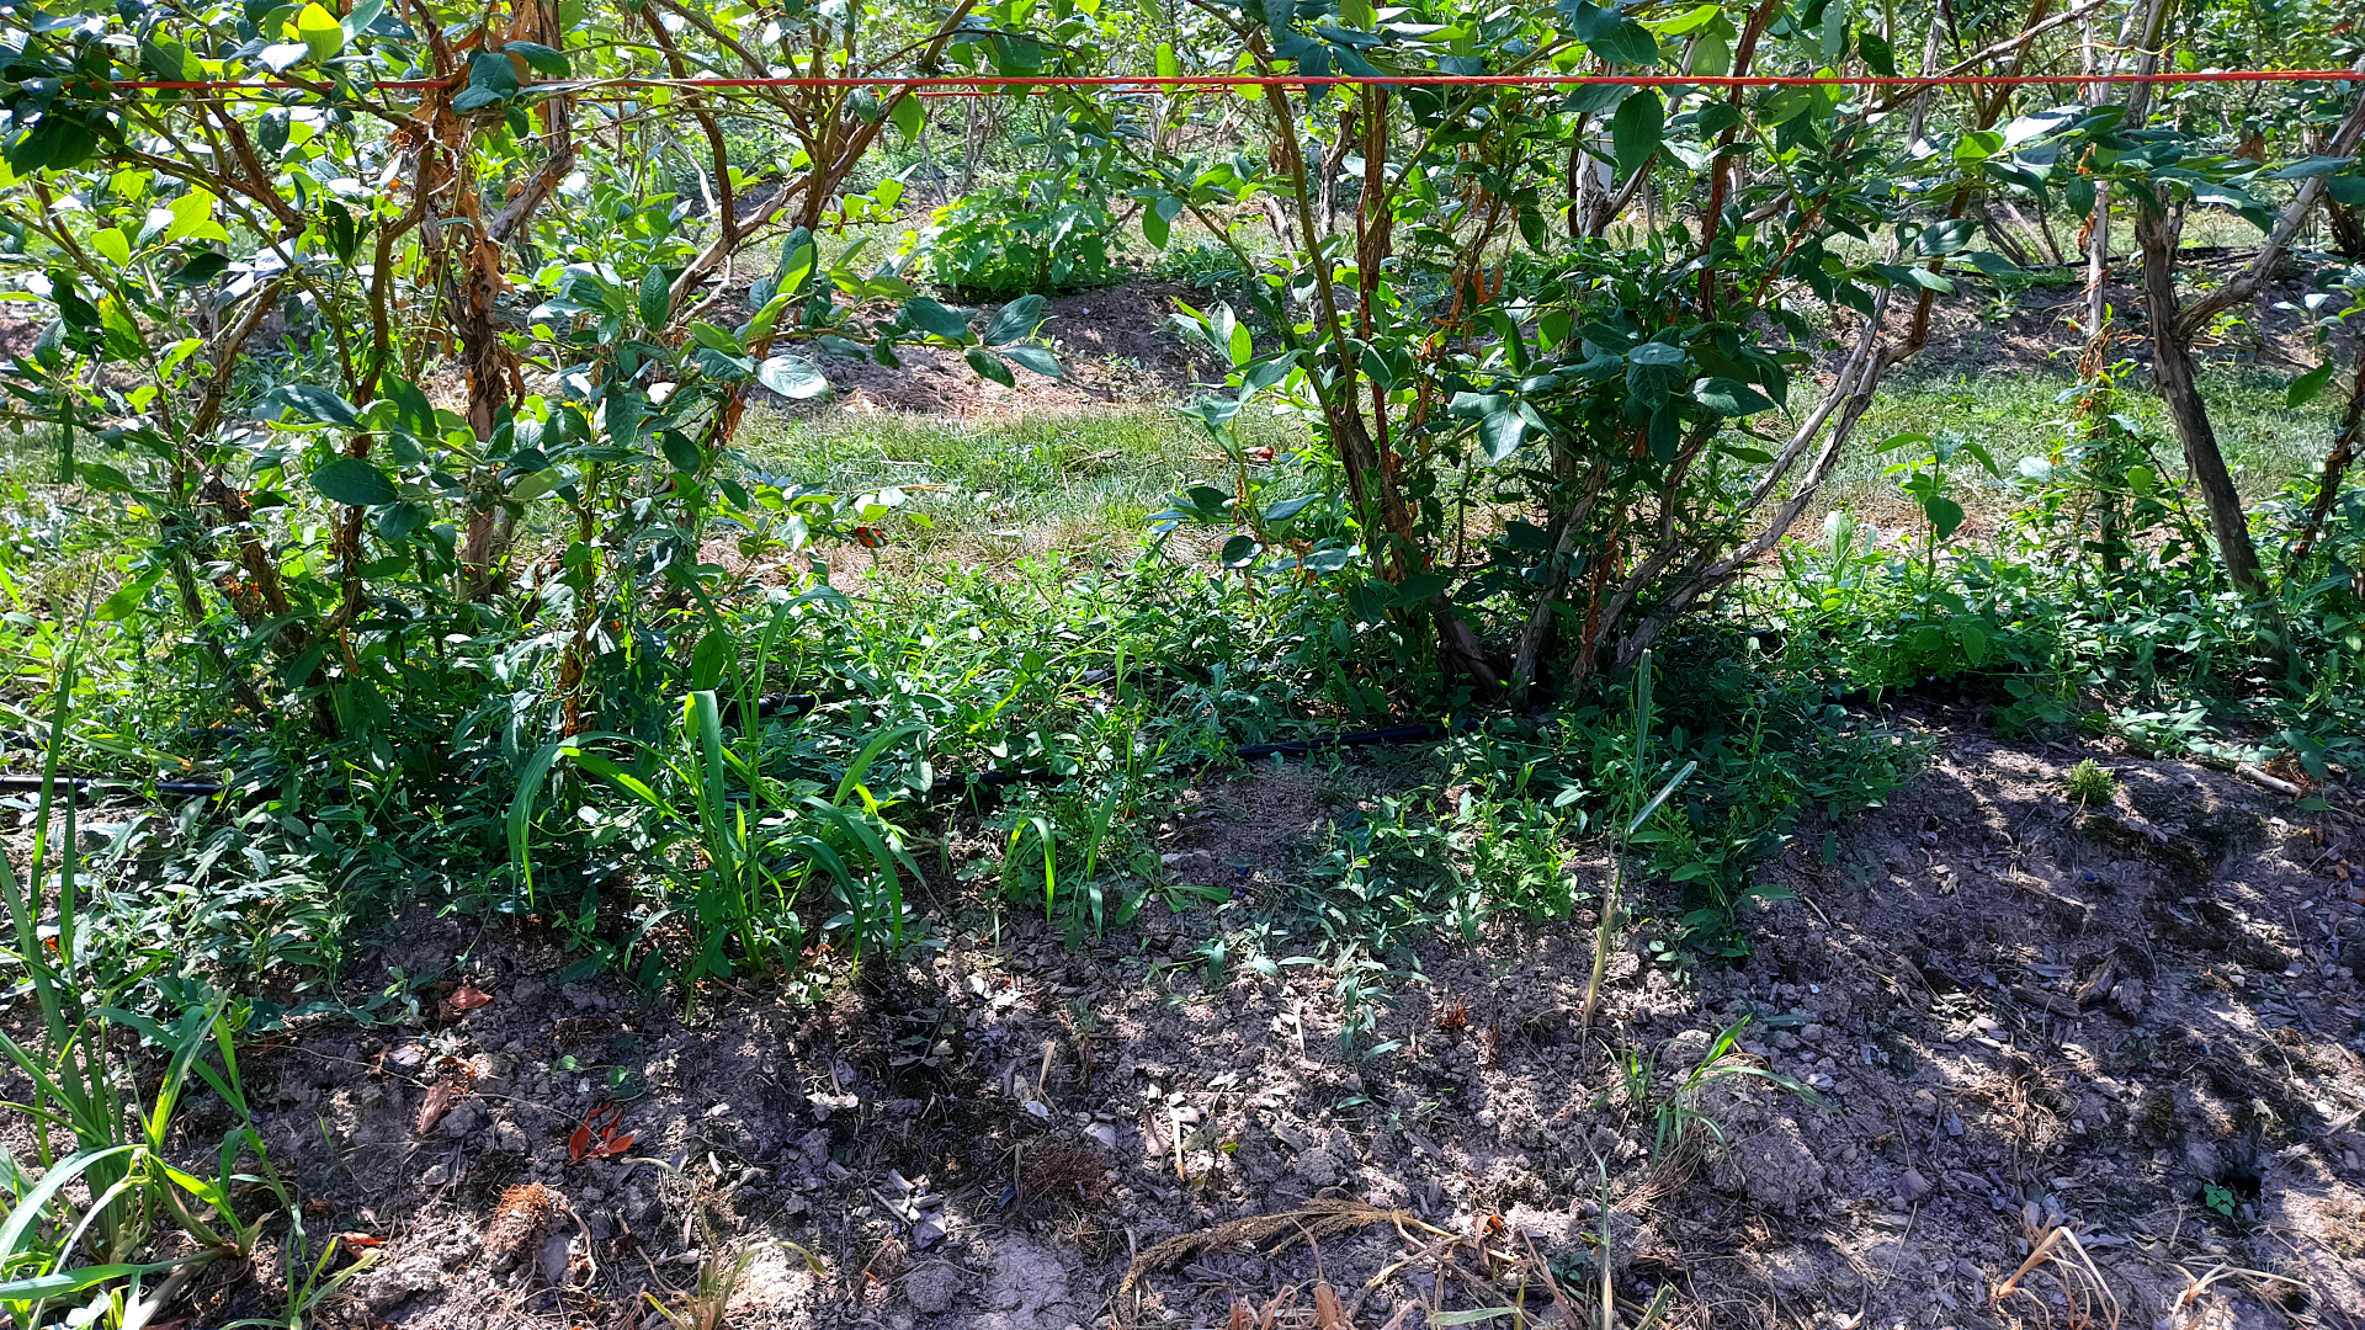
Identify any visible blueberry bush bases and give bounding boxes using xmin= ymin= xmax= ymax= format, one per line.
xmin=2111 ymin=406 xmax=2365 ymax=783
xmin=145 ymin=496 xmax=755 ymax=913
xmin=960 ymin=203 xmax=1147 ymax=319
xmin=1276 ymin=424 xmax=1845 ymax=819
